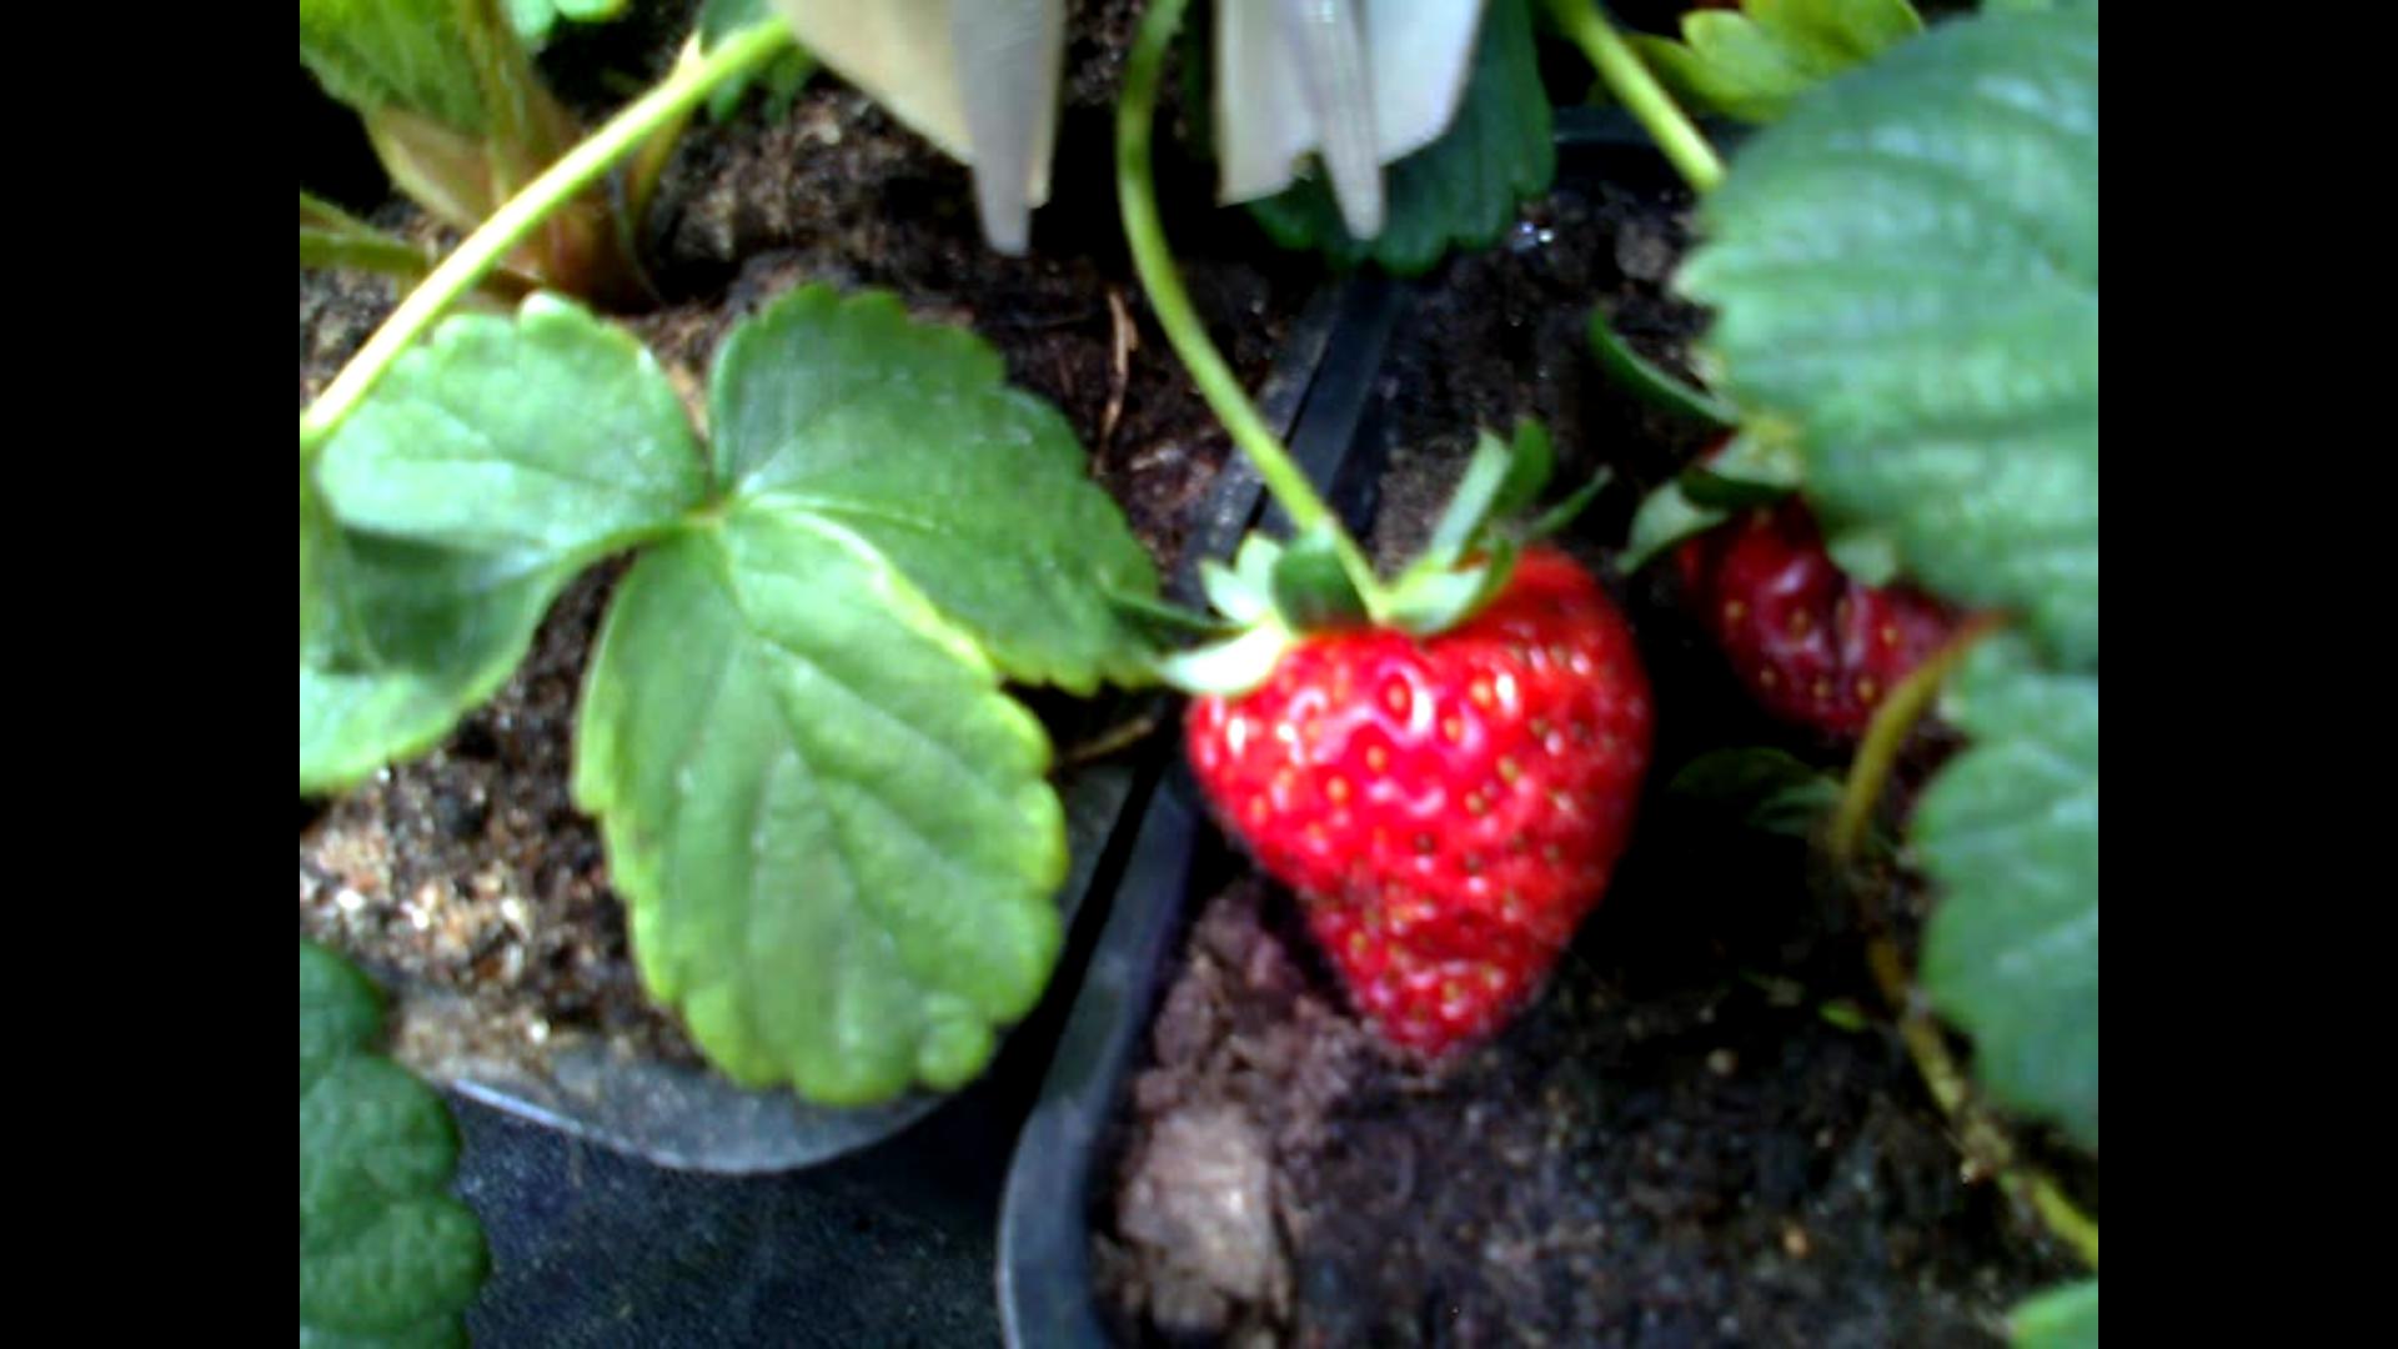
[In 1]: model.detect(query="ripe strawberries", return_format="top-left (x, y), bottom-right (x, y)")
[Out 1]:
top-left (1145, 528), bottom-right (1710, 1058)
top-left (1709, 413), bottom-right (2106, 761)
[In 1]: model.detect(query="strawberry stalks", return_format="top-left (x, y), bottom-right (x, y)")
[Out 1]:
top-left (1087, 133), bottom-right (1517, 689)
top-left (1529, 4), bottom-right (1971, 522)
